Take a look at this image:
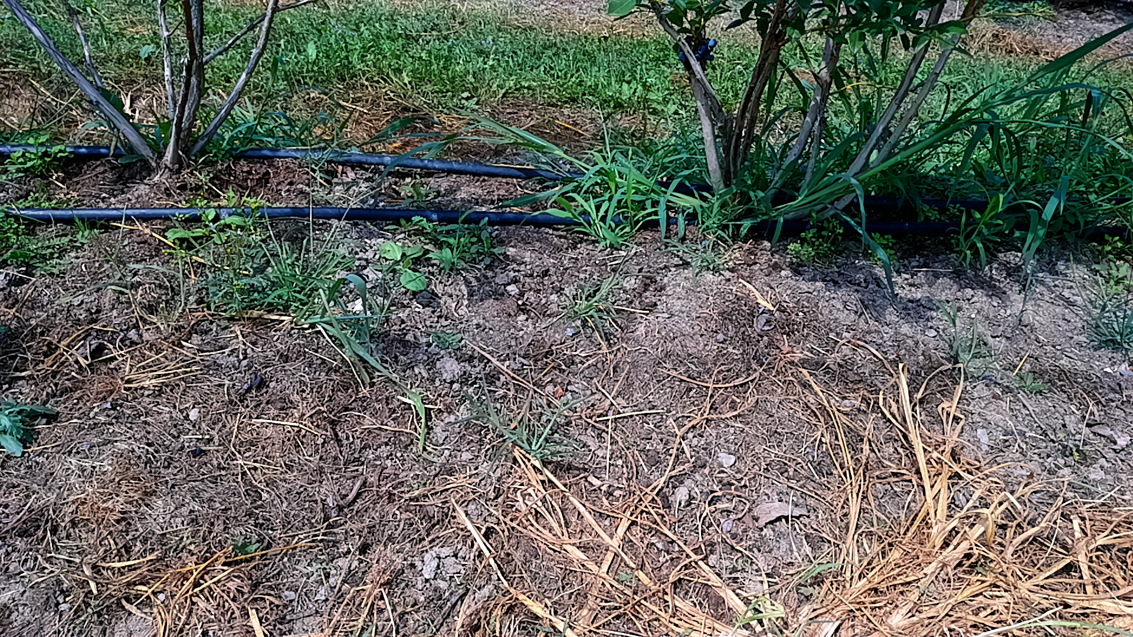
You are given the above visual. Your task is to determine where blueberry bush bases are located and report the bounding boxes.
[669,91,926,265]
[58,52,269,220]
